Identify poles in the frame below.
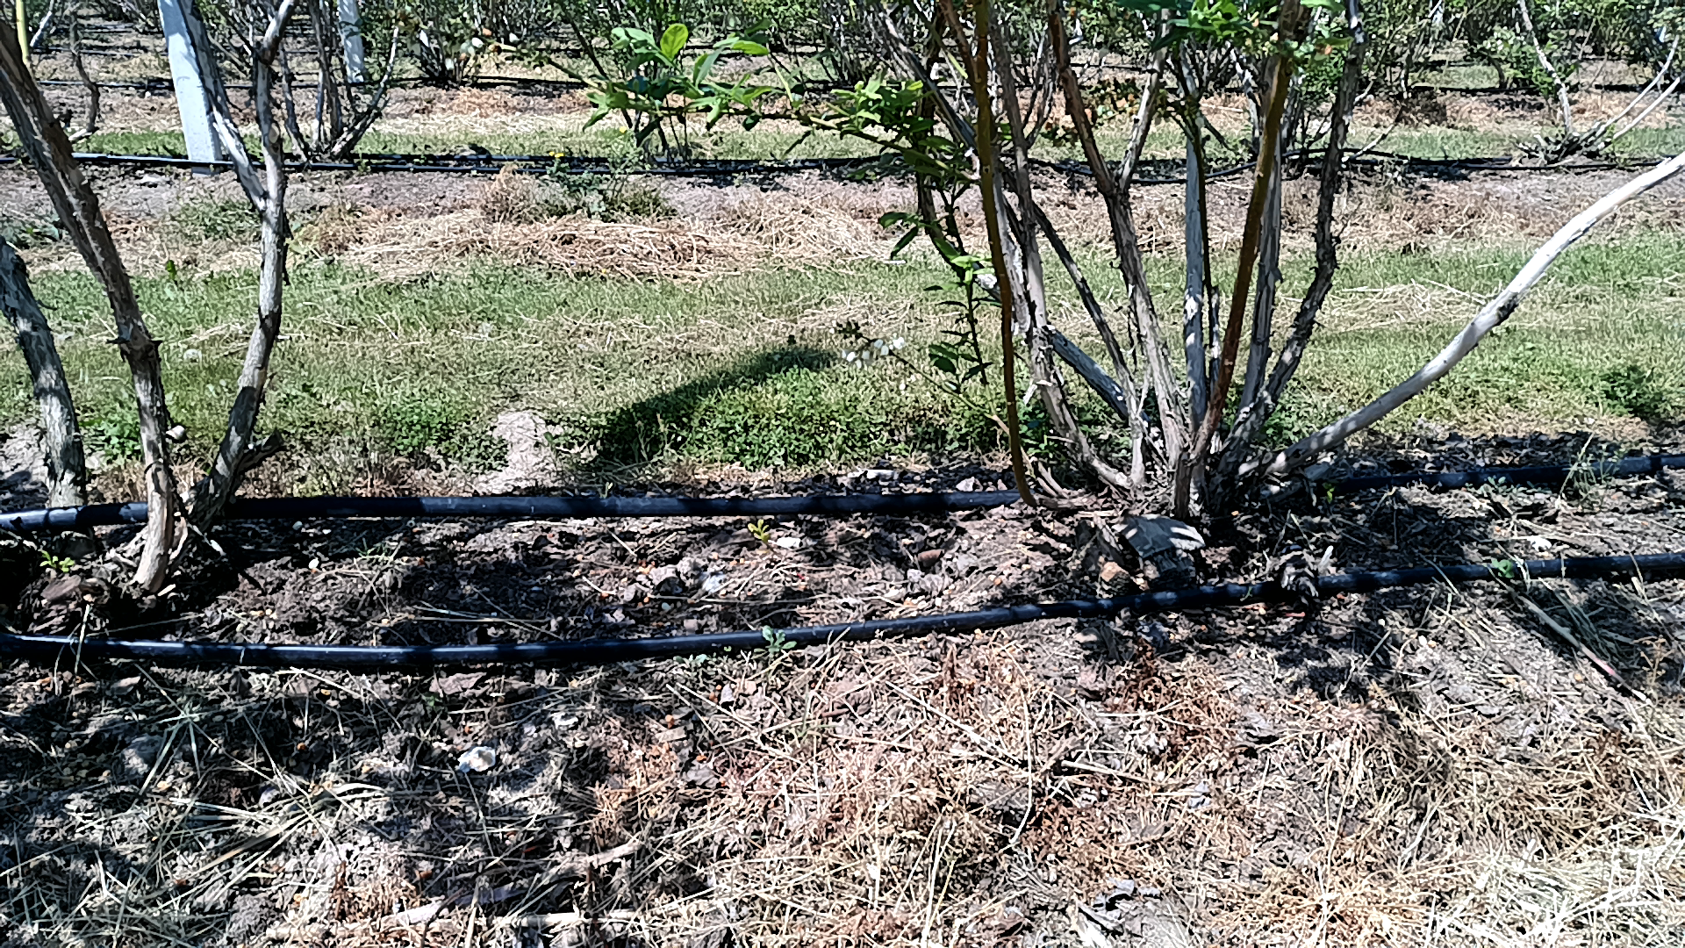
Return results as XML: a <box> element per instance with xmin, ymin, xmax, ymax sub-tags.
<box><xmin>336</xmin><ymin>5</ymin><xmax>365</xmax><ymax>81</ymax></box>
<box><xmin>156</xmin><ymin>18</ymin><xmax>226</xmax><ymax>165</ymax></box>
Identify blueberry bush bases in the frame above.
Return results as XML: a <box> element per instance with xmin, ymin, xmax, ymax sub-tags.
<box><xmin>1524</xmin><ymin>100</ymin><xmax>1637</xmax><ymax>183</ymax></box>
<box><xmin>980</xmin><ymin>292</ymin><xmax>1391</xmax><ymax>622</ymax></box>
<box><xmin>417</xmin><ymin>52</ymin><xmax>489</xmax><ymax>94</ymax></box>
<box><xmin>821</xmin><ymin>47</ymin><xmax>885</xmax><ymax>100</ymax></box>
<box><xmin>0</xmin><ymin>310</ymin><xmax>312</xmax><ymax>678</ymax></box>
<box><xmin>1208</xmin><ymin>90</ymin><xmax>1368</xmax><ymax>192</ymax></box>
<box><xmin>268</xmin><ymin>105</ymin><xmax>384</xmax><ymax>183</ymax></box>
<box><xmin>595</xmin><ymin>87</ymin><xmax>727</xmax><ymax>176</ymax></box>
